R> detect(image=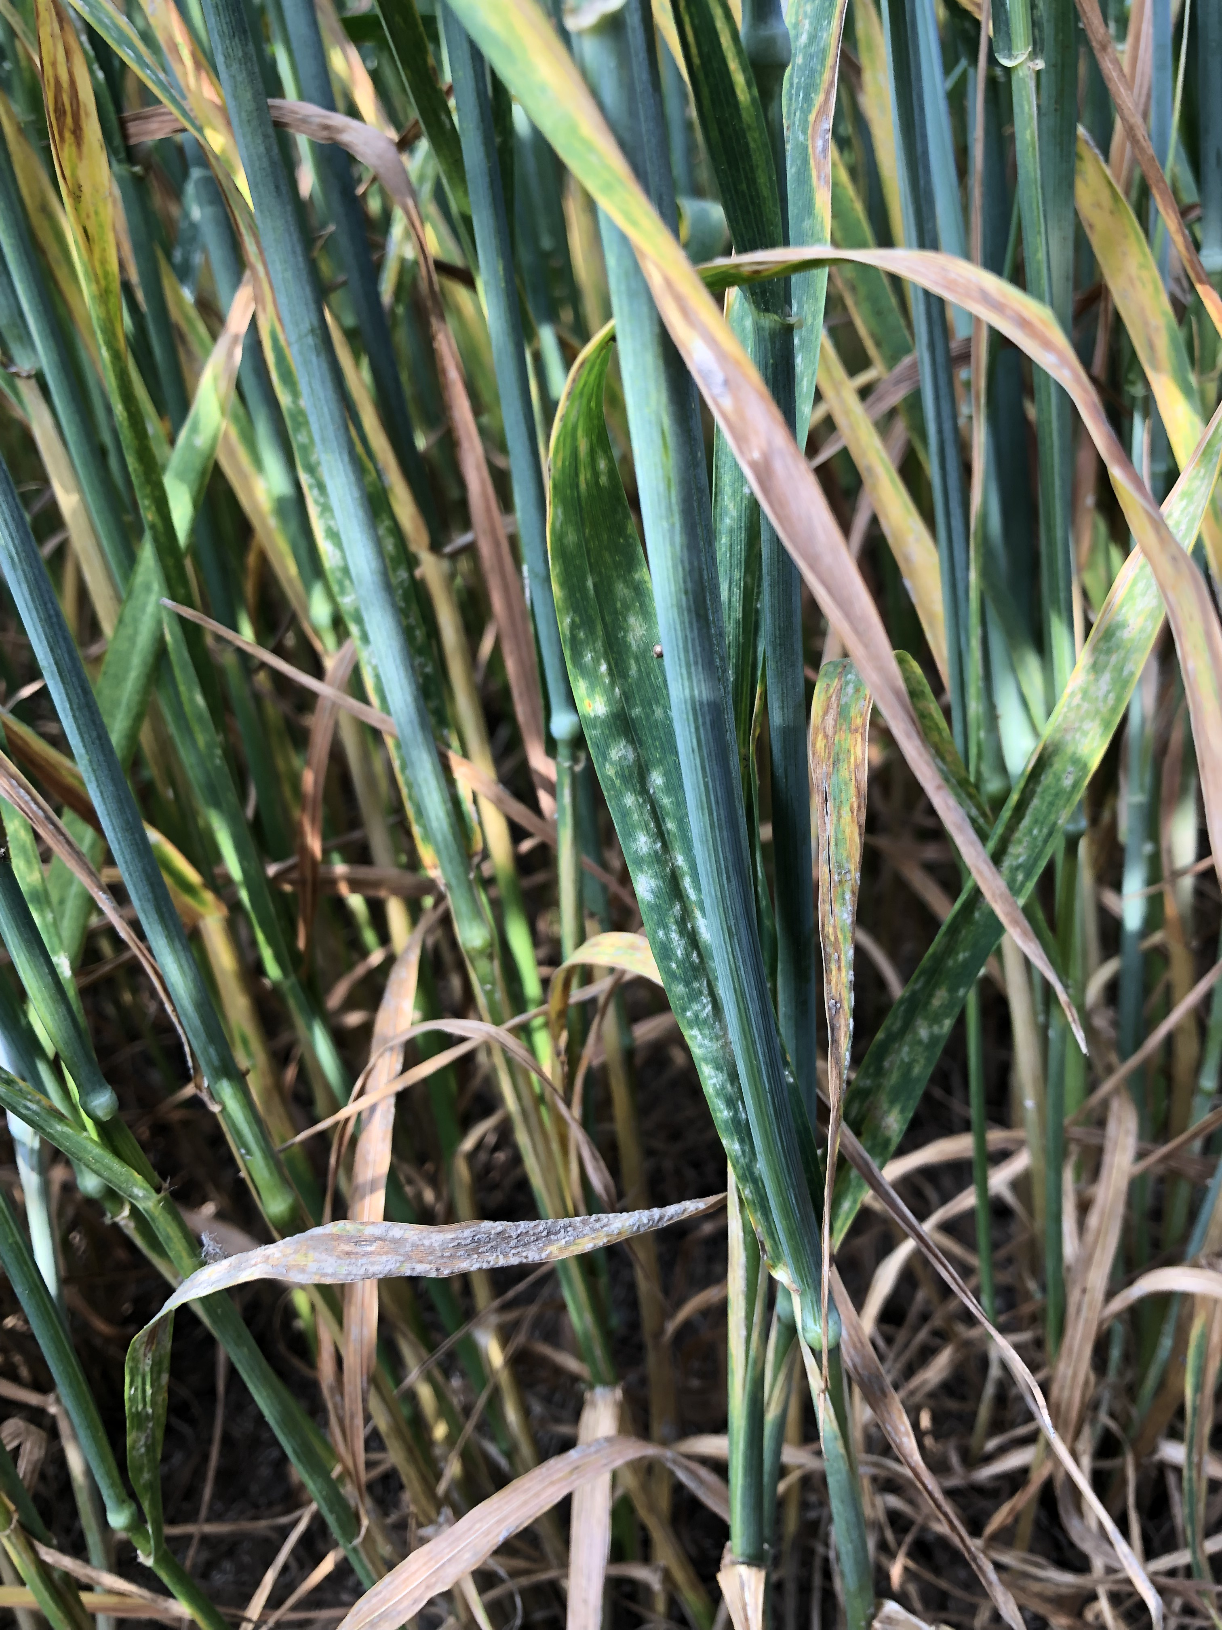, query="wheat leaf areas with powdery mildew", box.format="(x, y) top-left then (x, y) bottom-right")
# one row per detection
(211, 1184), (707, 1308)
(265, 340), (375, 668)
(763, 5), (851, 174)
(842, 376), (1212, 1281)
(348, 423), (516, 720)
(516, 356), (840, 1277)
